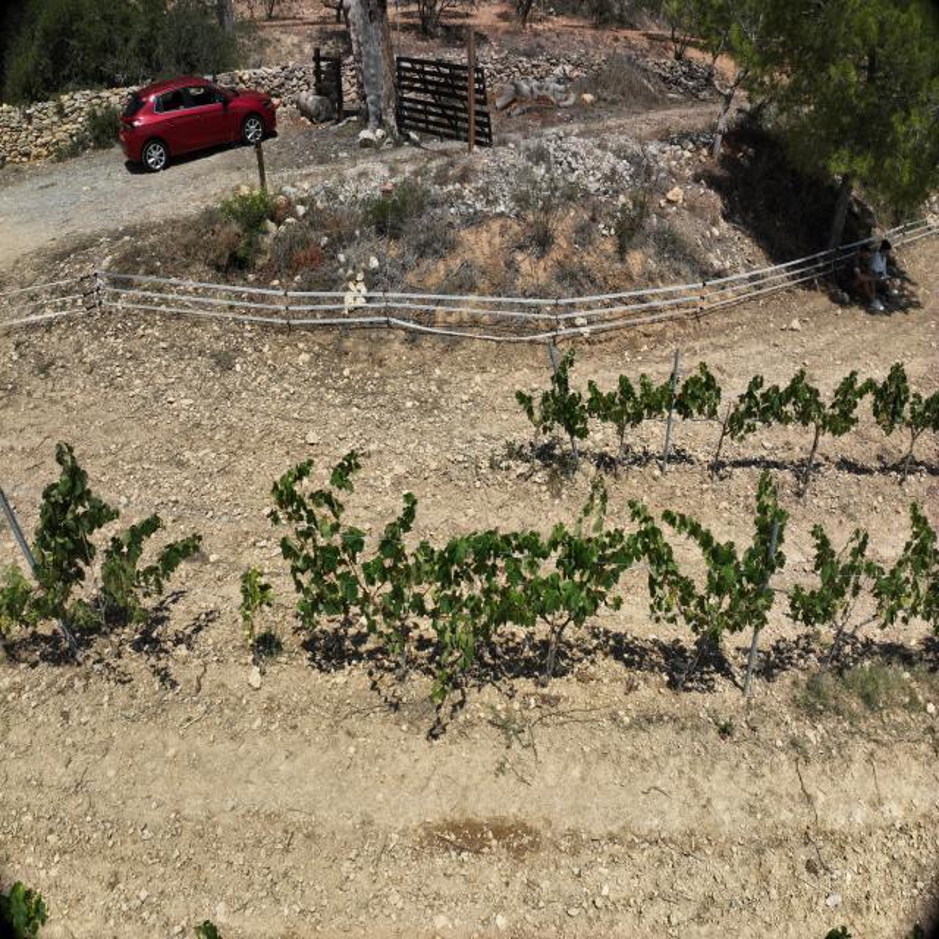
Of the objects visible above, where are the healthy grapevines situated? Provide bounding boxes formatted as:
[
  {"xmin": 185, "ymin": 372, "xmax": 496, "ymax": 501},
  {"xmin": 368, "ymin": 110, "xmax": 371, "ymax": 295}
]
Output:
[
  {"xmin": 459, "ymin": 492, "xmax": 646, "ymax": 705},
  {"xmin": 0, "ymin": 430, "xmax": 200, "ymax": 695},
  {"xmin": 783, "ymin": 481, "xmax": 939, "ymax": 697},
  {"xmin": 629, "ymin": 471, "xmax": 794, "ymax": 701},
  {"xmin": 236, "ymin": 443, "xmax": 480, "ymax": 722}
]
